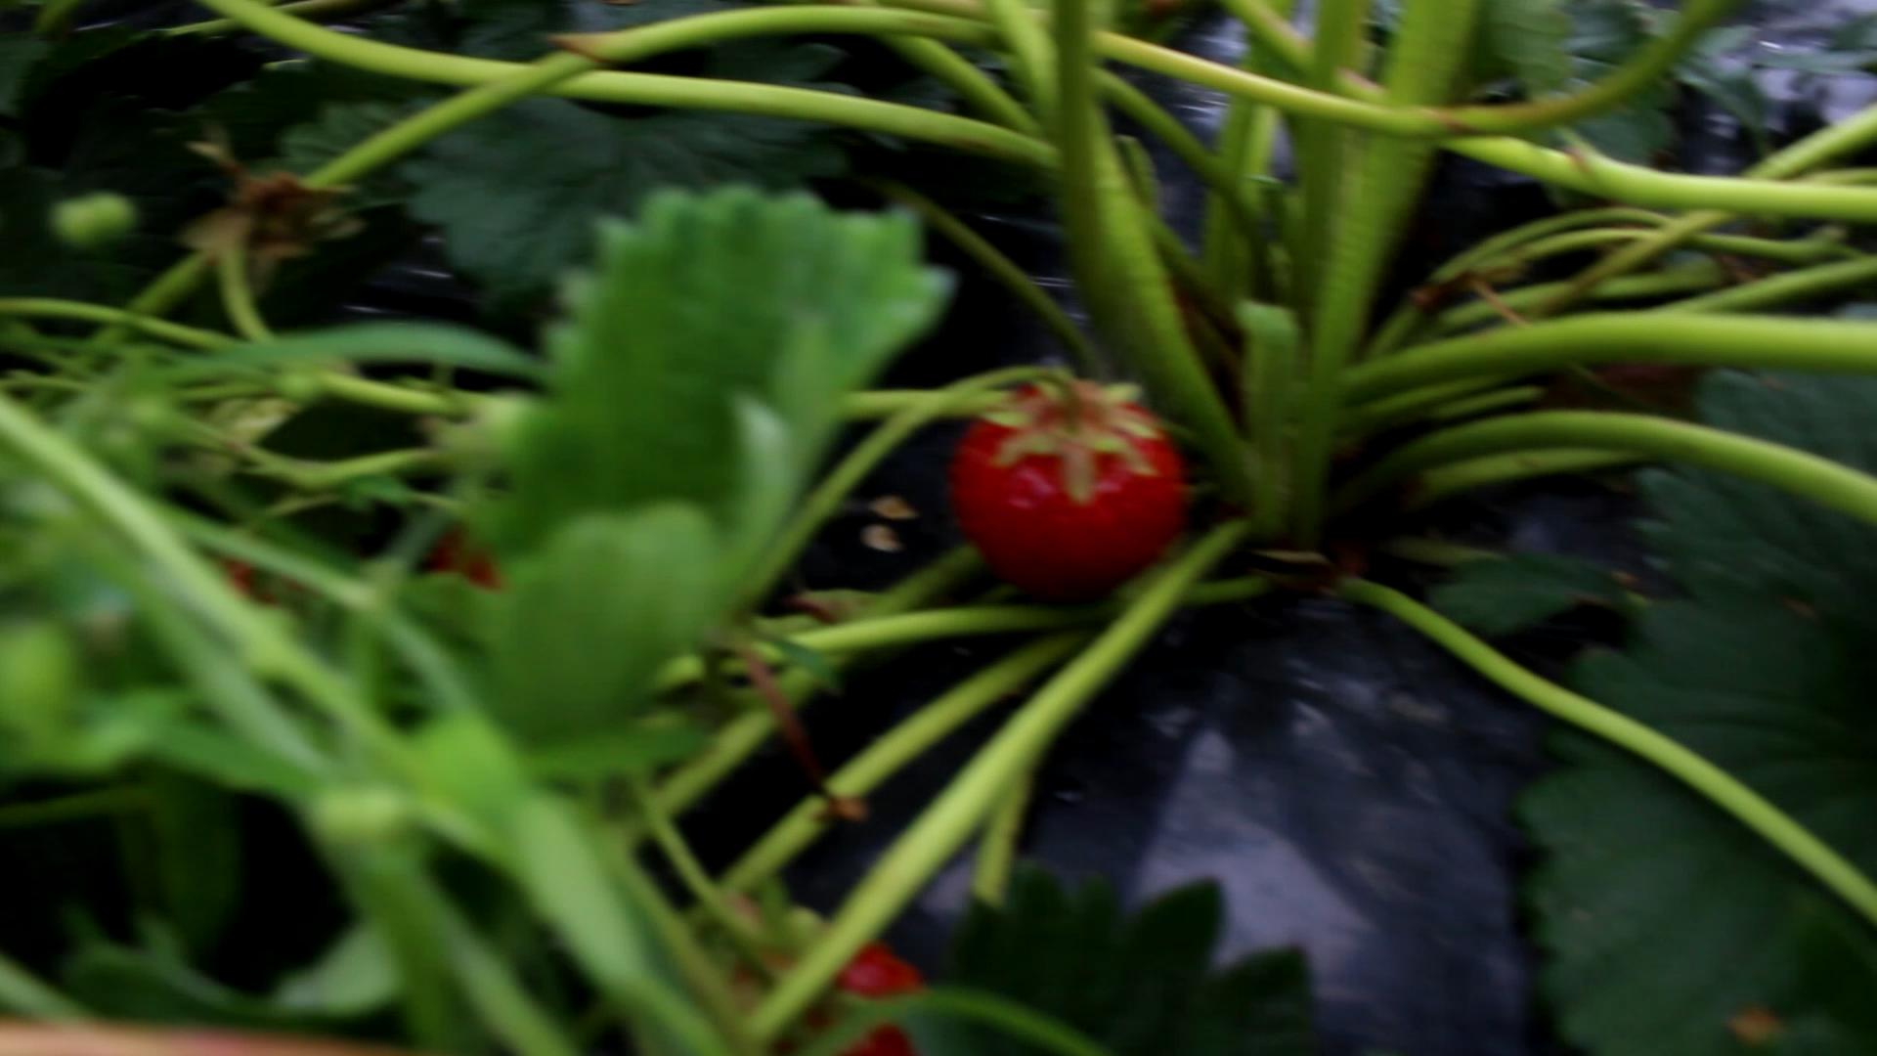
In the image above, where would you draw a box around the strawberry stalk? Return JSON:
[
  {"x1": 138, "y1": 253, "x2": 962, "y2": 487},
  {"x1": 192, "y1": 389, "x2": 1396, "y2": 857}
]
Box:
[{"x1": 822, "y1": 318, "x2": 1091, "y2": 549}]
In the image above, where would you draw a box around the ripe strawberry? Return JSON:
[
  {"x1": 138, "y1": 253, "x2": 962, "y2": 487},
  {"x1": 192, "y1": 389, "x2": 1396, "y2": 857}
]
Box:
[{"x1": 935, "y1": 323, "x2": 1221, "y2": 614}]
